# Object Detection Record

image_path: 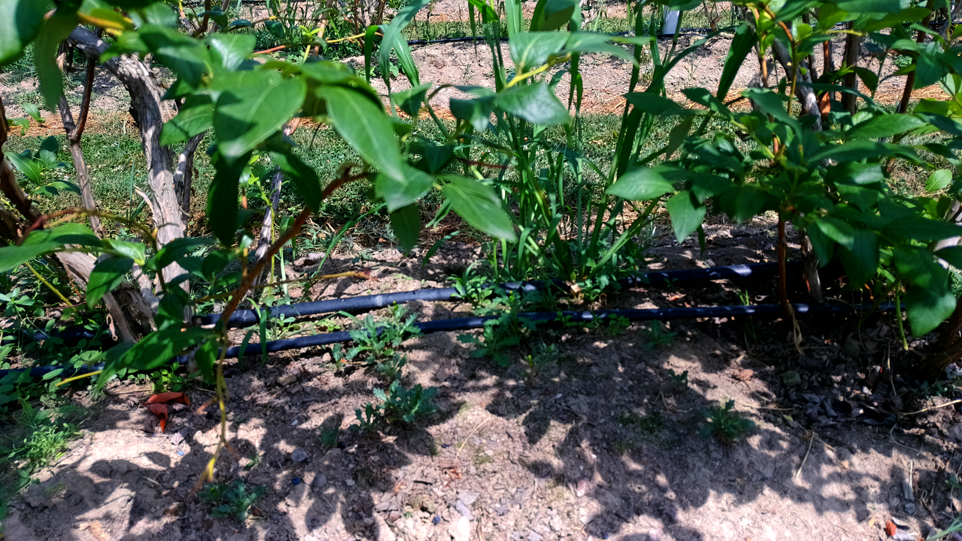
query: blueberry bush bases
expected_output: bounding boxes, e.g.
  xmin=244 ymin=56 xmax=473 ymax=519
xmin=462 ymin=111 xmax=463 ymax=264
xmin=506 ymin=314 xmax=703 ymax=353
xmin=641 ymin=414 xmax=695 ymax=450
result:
xmin=18 ymin=195 xmax=293 ymax=419
xmin=718 ymin=158 xmax=962 ymax=424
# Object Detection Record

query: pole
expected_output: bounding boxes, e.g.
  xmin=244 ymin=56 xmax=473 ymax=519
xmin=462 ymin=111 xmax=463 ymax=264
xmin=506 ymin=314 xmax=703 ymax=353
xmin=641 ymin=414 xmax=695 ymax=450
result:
xmin=662 ymin=5 xmax=679 ymax=43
